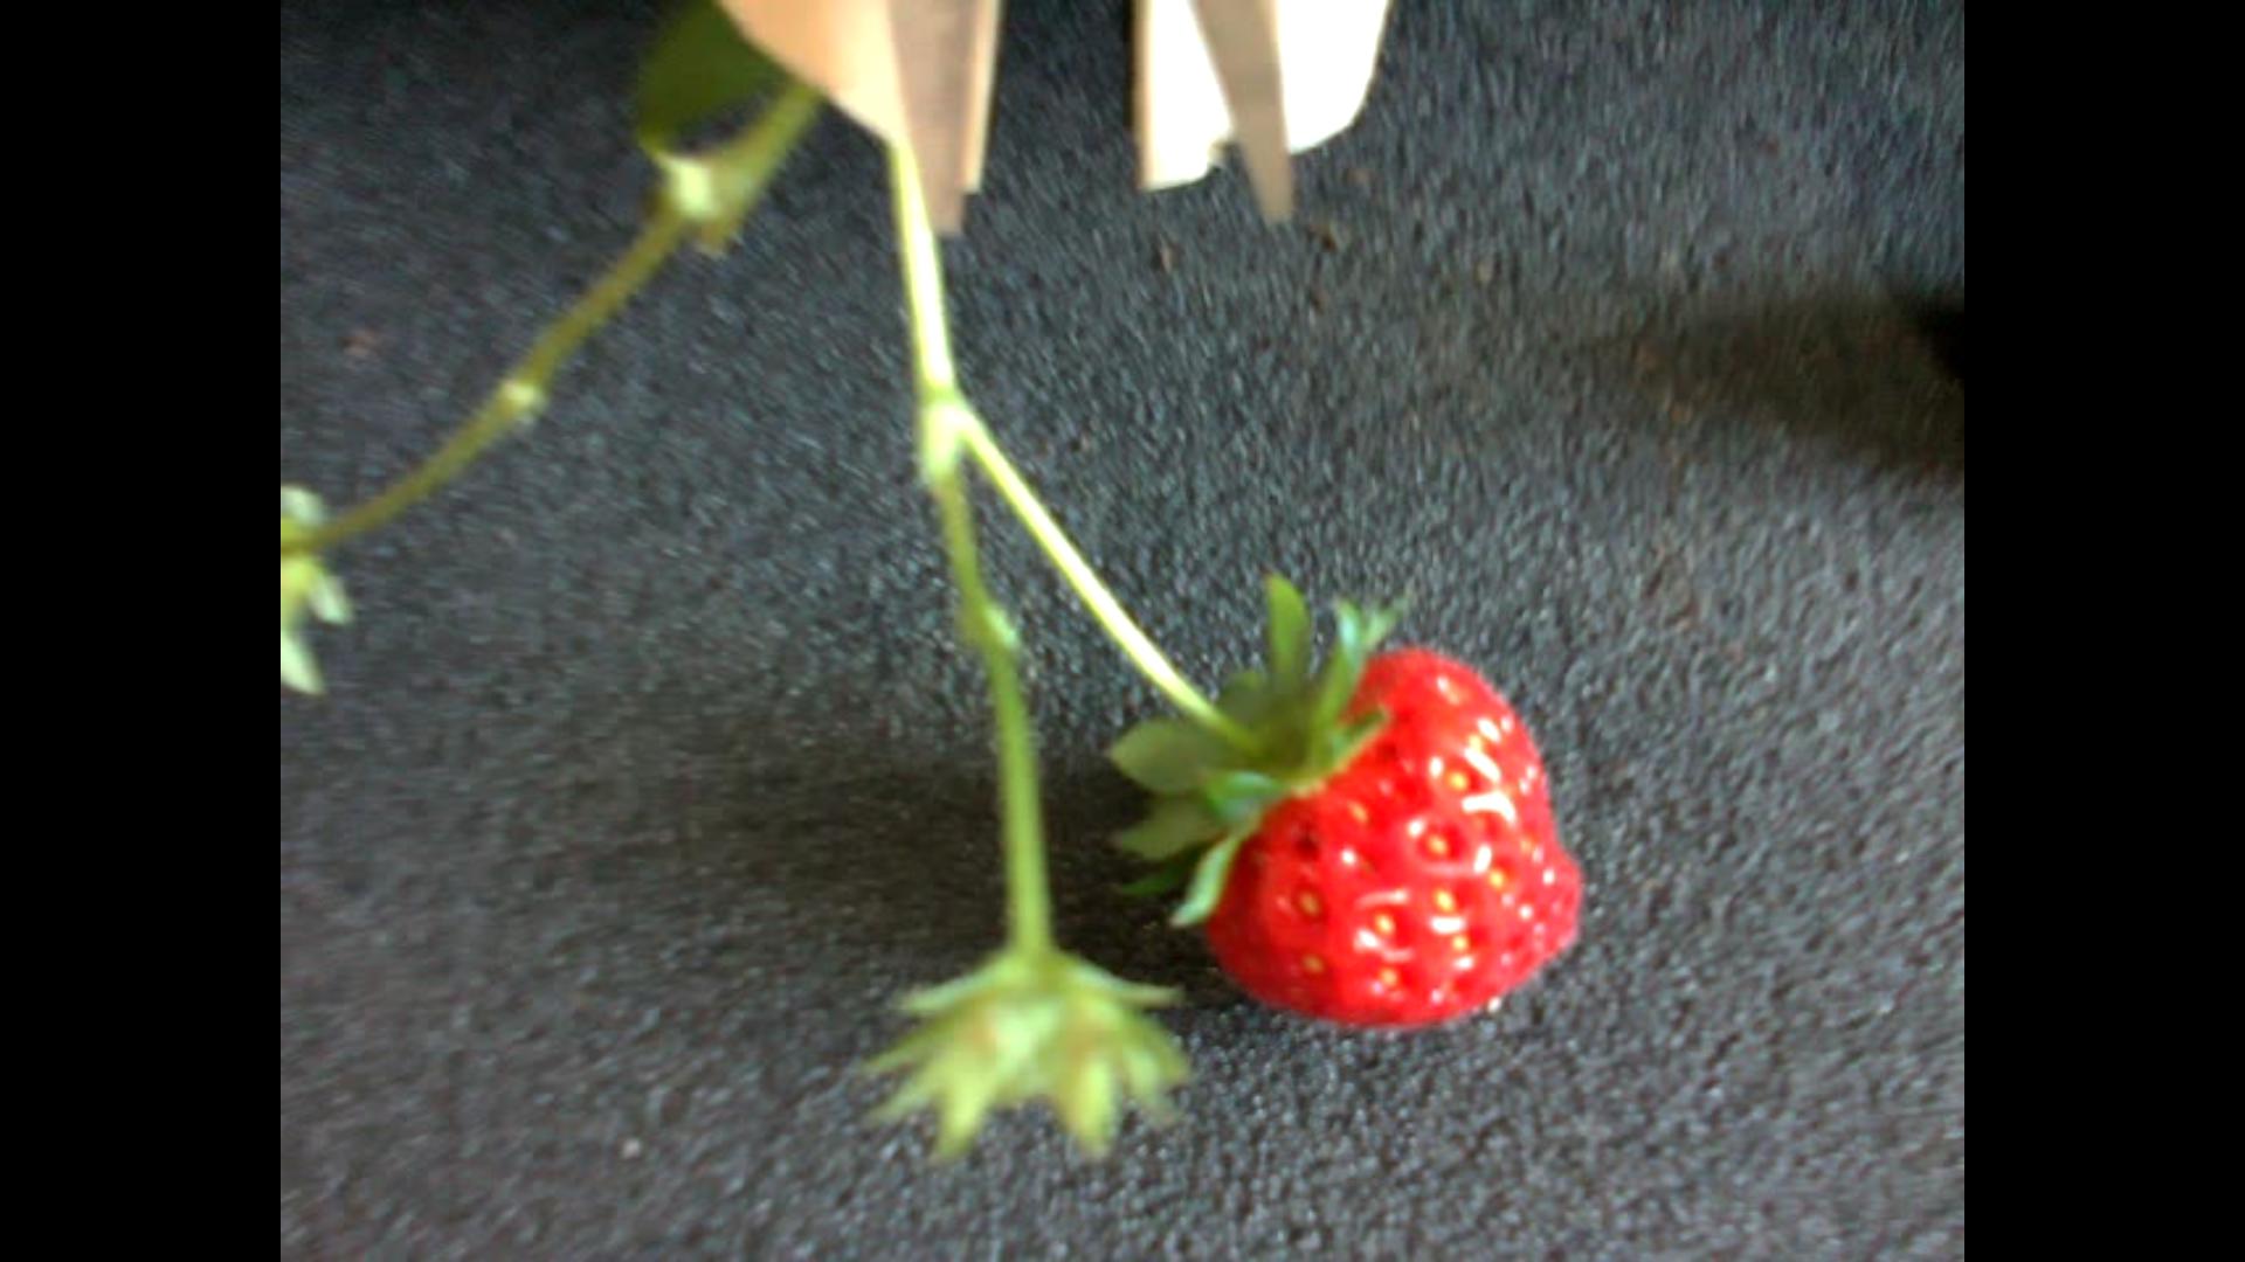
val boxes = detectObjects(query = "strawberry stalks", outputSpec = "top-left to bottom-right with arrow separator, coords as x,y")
968,485 -> 1359,805
979,726 -> 1106,1007
291,439 -> 507,549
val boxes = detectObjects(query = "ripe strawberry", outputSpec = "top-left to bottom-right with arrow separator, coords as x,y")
1196,656 -> 1619,1042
